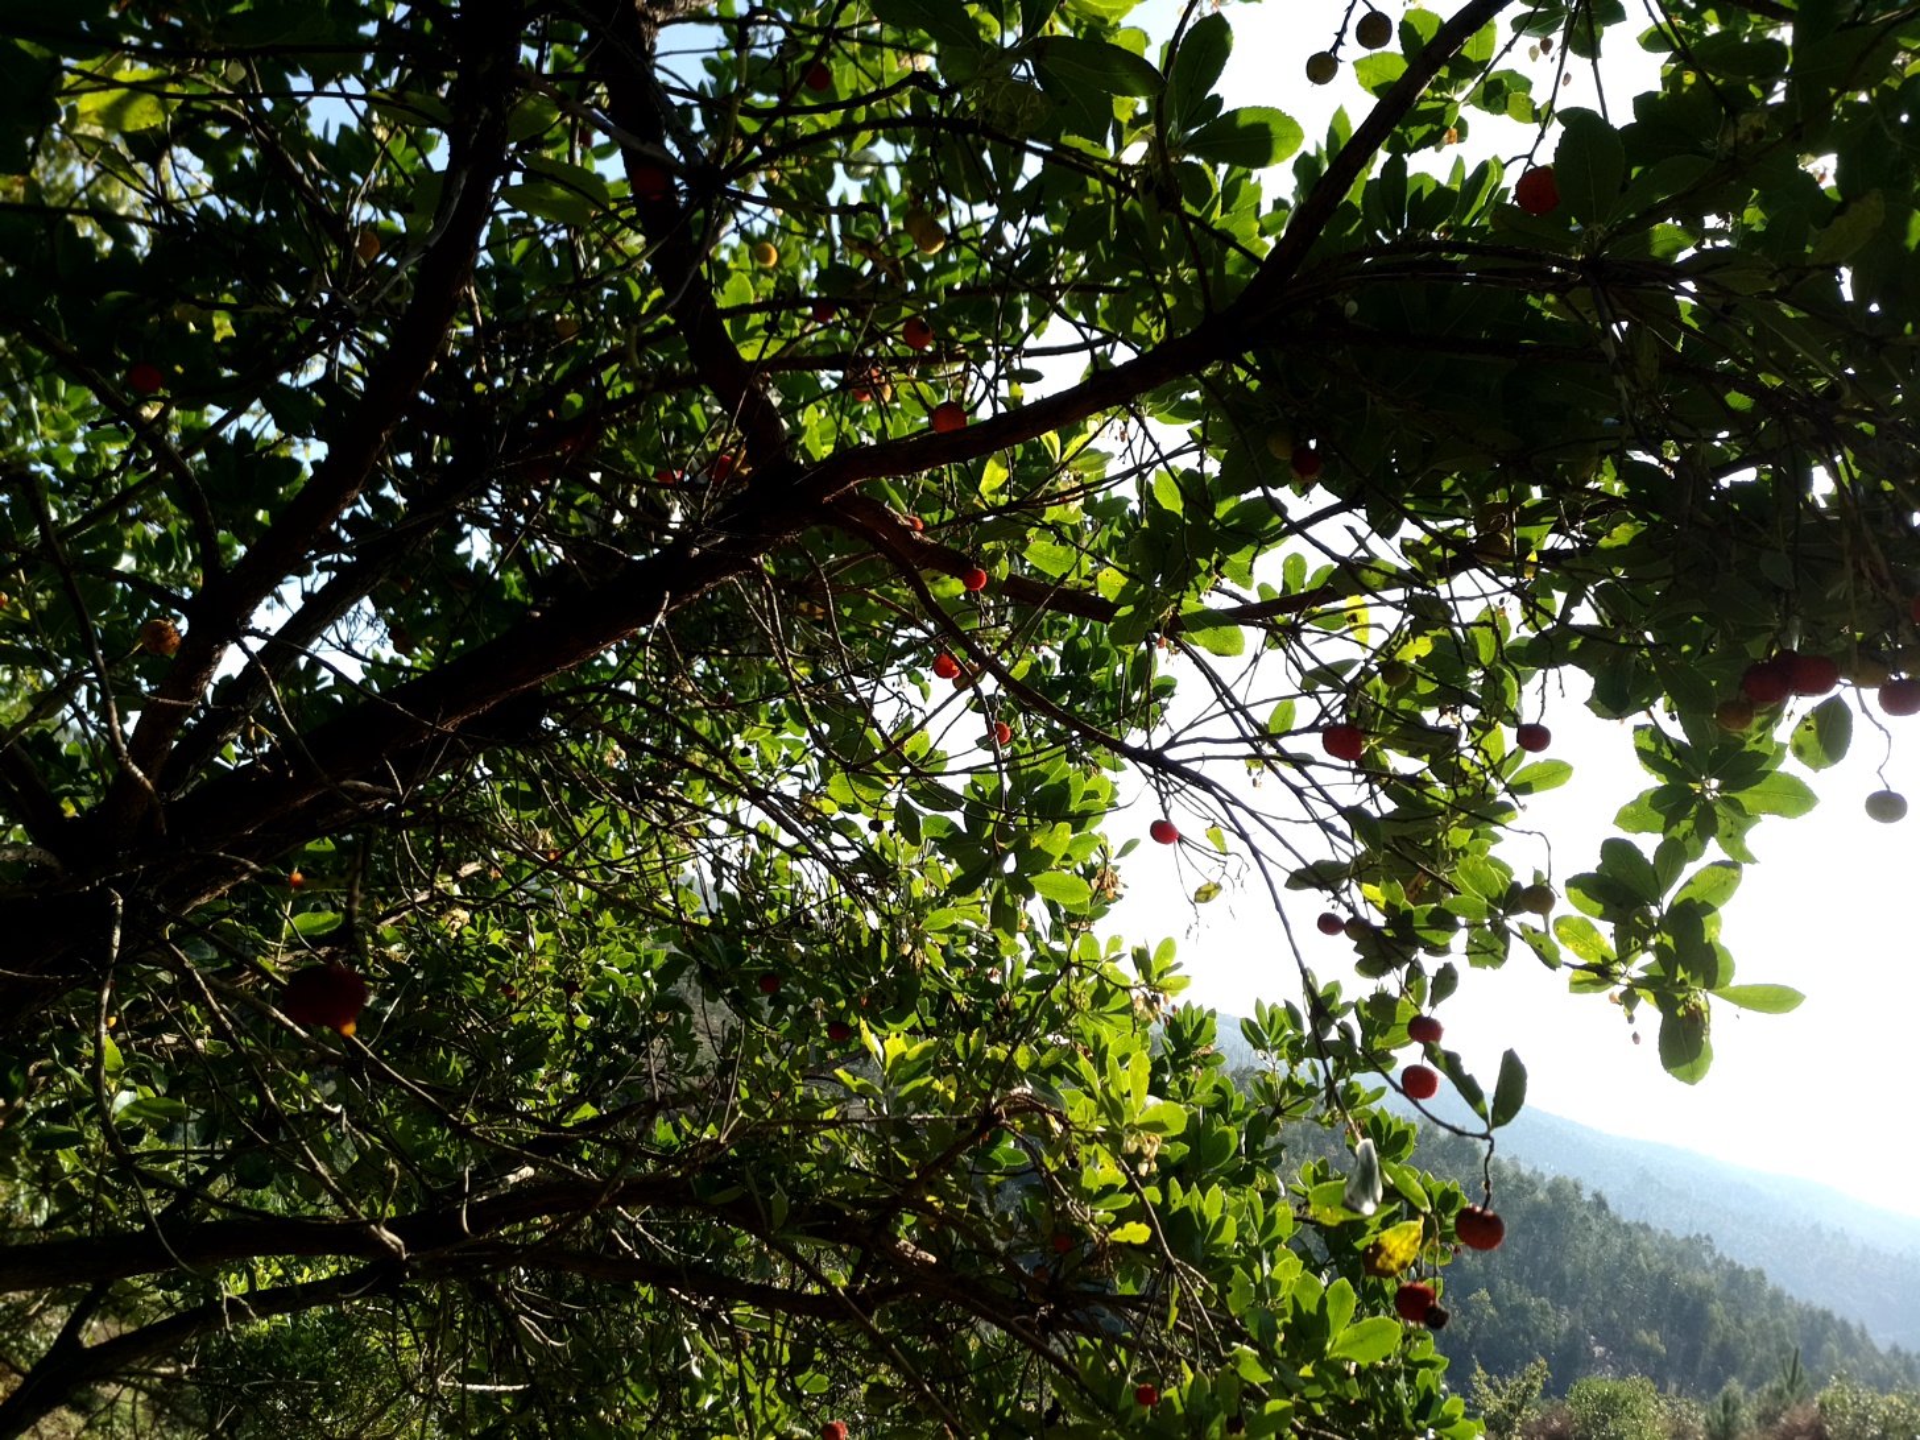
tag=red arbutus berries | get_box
[1878,675,1920,719]
[1321,720,1369,764]
[649,460,684,488]
[819,1418,851,1440]
[1149,820,1182,845]
[1406,1014,1446,1046]
[823,1018,853,1043]
[1318,911,1345,936]
[988,721,1011,743]
[1049,1232,1072,1252]
[963,568,988,590]
[1131,1381,1158,1408]
[1517,163,1568,214]
[705,452,733,485]
[1743,659,1790,700]
[1454,1204,1506,1251]
[282,957,364,1036]
[902,318,934,349]
[1392,1280,1438,1322]
[929,398,971,434]
[756,970,781,995]
[1517,722,1552,753]
[1400,1063,1440,1101]
[1796,654,1844,697]
[930,650,962,678]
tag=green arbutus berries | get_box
[1381,660,1411,689]
[1715,697,1755,732]
[1263,420,1300,462]
[1518,884,1555,913]
[1344,917,1375,944]
[1867,786,1907,824]
[1846,646,1889,686]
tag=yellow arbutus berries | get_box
[352,225,380,260]
[755,241,778,267]
[139,618,184,656]
[552,318,579,341]
[913,220,947,255]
